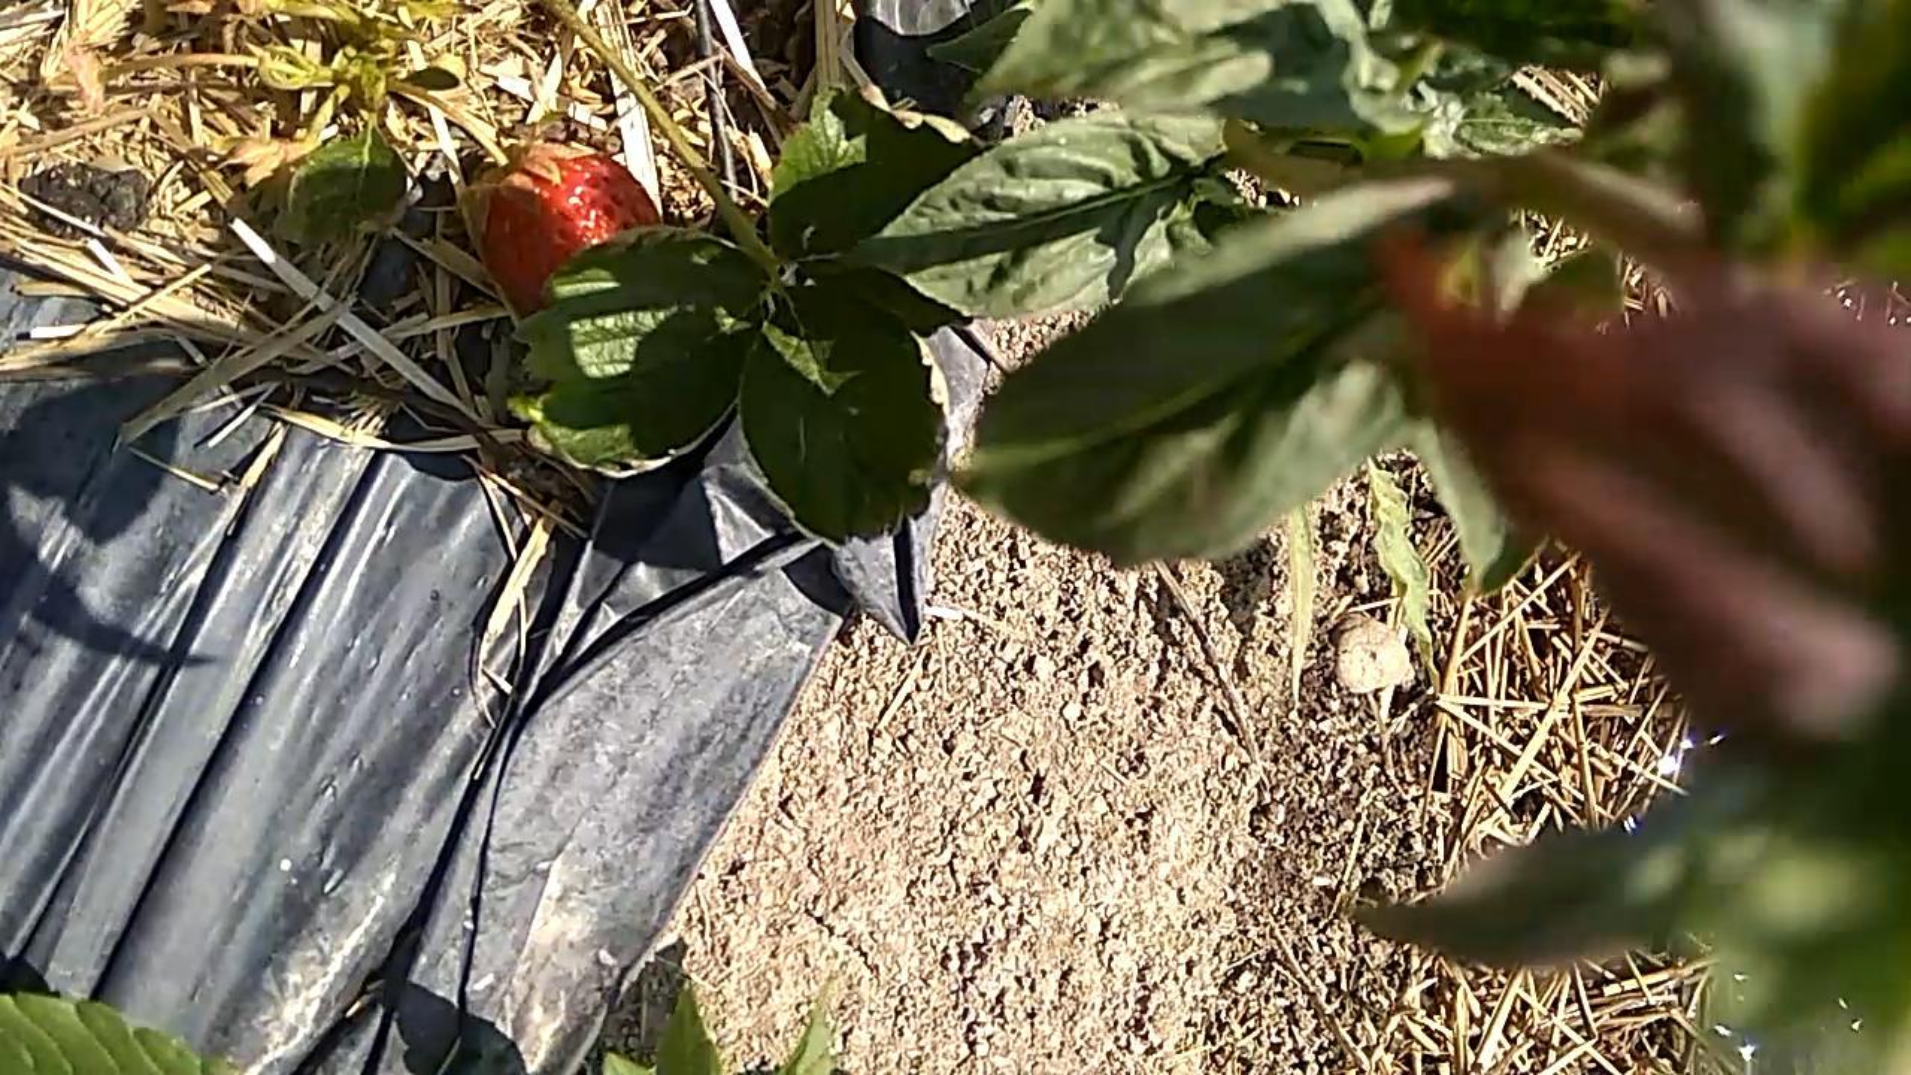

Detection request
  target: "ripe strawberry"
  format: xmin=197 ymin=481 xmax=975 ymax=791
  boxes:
xmin=458 ymin=142 xmax=682 ymax=330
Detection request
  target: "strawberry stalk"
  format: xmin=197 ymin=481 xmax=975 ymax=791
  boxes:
xmin=436 ymin=100 xmax=527 ymax=190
